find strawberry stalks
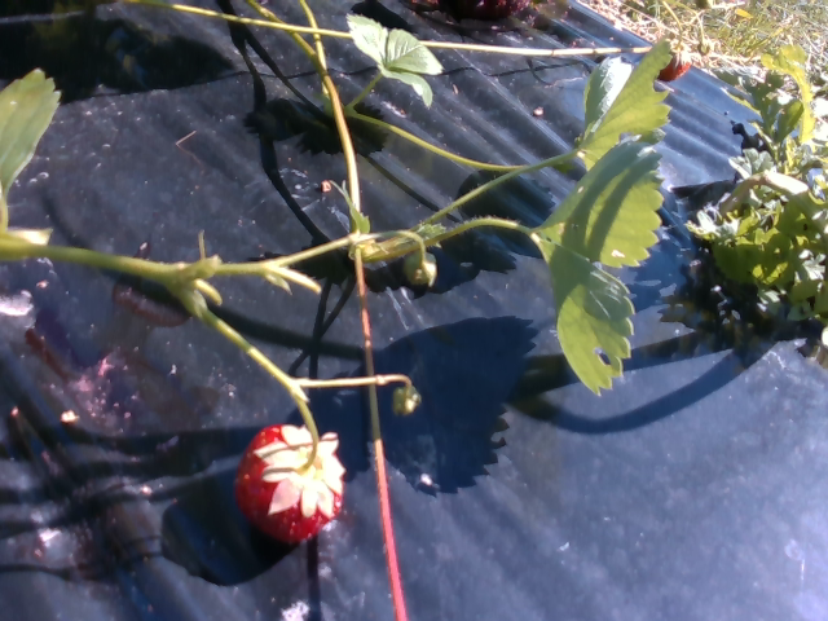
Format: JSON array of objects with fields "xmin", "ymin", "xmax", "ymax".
[
  {"xmin": 285, "ymin": 380, "xmax": 329, "ymax": 499},
  {"xmin": 672, "ymin": 16, "xmax": 687, "ymax": 52}
]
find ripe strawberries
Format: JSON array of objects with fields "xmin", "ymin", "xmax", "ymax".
[
  {"xmin": 651, "ymin": 45, "xmax": 694, "ymax": 87},
  {"xmin": 237, "ymin": 421, "xmax": 351, "ymax": 545}
]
